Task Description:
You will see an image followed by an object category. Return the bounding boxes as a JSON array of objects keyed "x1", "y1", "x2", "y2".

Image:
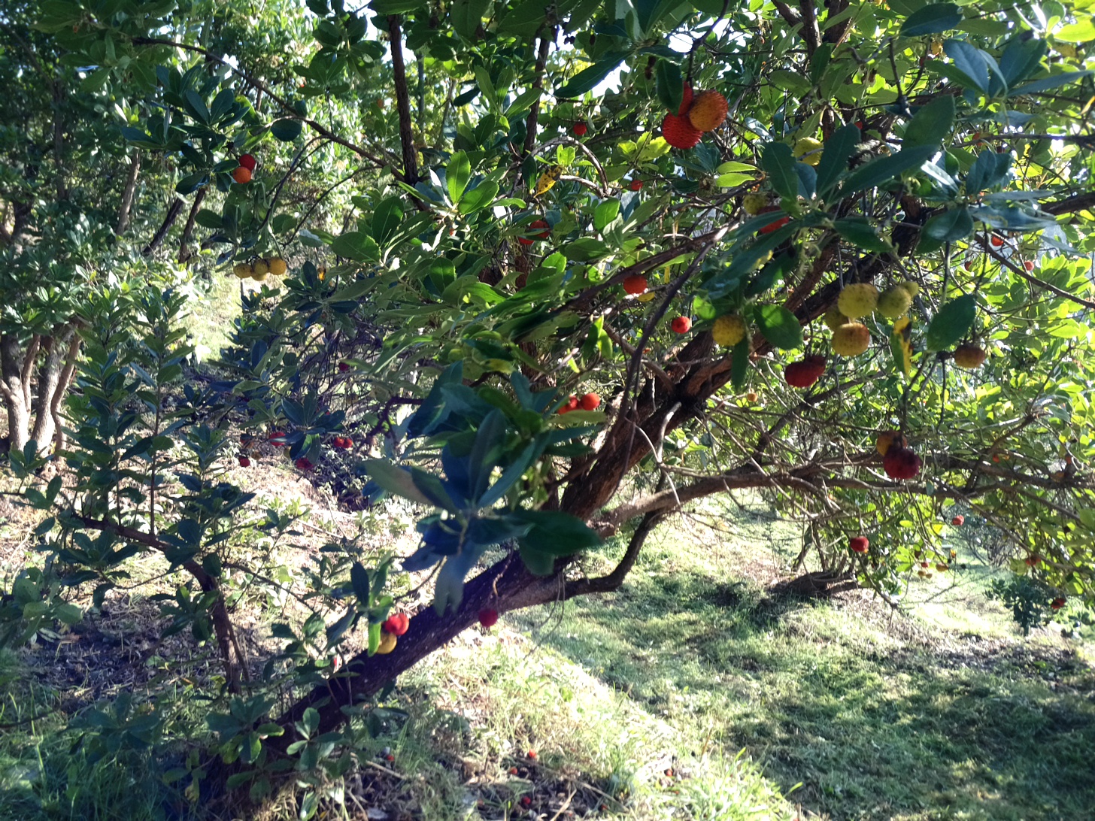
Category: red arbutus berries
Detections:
[
  {"x1": 632, "y1": 180, "x2": 642, "y2": 190},
  {"x1": 335, "y1": 436, "x2": 344, "y2": 447},
  {"x1": 564, "y1": 394, "x2": 579, "y2": 411},
  {"x1": 757, "y1": 202, "x2": 787, "y2": 232},
  {"x1": 479, "y1": 608, "x2": 499, "y2": 628},
  {"x1": 884, "y1": 447, "x2": 918, "y2": 480},
  {"x1": 238, "y1": 153, "x2": 256, "y2": 170},
  {"x1": 239, "y1": 458, "x2": 250, "y2": 467},
  {"x1": 269, "y1": 430, "x2": 285, "y2": 447},
  {"x1": 390, "y1": 612, "x2": 415, "y2": 635},
  {"x1": 1026, "y1": 557, "x2": 1036, "y2": 565},
  {"x1": 342, "y1": 438, "x2": 353, "y2": 448},
  {"x1": 1055, "y1": 598, "x2": 1065, "y2": 607},
  {"x1": 297, "y1": 456, "x2": 312, "y2": 469},
  {"x1": 991, "y1": 233, "x2": 1003, "y2": 246},
  {"x1": 784, "y1": 361, "x2": 816, "y2": 388},
  {"x1": 581, "y1": 393, "x2": 601, "y2": 409},
  {"x1": 573, "y1": 122, "x2": 587, "y2": 134},
  {"x1": 921, "y1": 562, "x2": 929, "y2": 568},
  {"x1": 624, "y1": 275, "x2": 648, "y2": 294},
  {"x1": 804, "y1": 354, "x2": 829, "y2": 376},
  {"x1": 953, "y1": 517, "x2": 963, "y2": 525},
  {"x1": 852, "y1": 536, "x2": 869, "y2": 552},
  {"x1": 387, "y1": 616, "x2": 401, "y2": 632},
  {"x1": 1051, "y1": 600, "x2": 1059, "y2": 608},
  {"x1": 531, "y1": 218, "x2": 549, "y2": 238},
  {"x1": 662, "y1": 112, "x2": 702, "y2": 147},
  {"x1": 671, "y1": 316, "x2": 691, "y2": 334},
  {"x1": 1022, "y1": 261, "x2": 1034, "y2": 270}
]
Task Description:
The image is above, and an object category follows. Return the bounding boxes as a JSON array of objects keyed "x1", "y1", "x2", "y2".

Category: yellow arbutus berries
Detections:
[
  {"x1": 832, "y1": 319, "x2": 870, "y2": 356},
  {"x1": 268, "y1": 256, "x2": 287, "y2": 274},
  {"x1": 875, "y1": 427, "x2": 909, "y2": 454},
  {"x1": 687, "y1": 91, "x2": 727, "y2": 129},
  {"x1": 955, "y1": 345, "x2": 984, "y2": 369},
  {"x1": 748, "y1": 393, "x2": 757, "y2": 402},
  {"x1": 919, "y1": 569, "x2": 926, "y2": 576},
  {"x1": 710, "y1": 309, "x2": 745, "y2": 347},
  {"x1": 234, "y1": 166, "x2": 250, "y2": 183},
  {"x1": 379, "y1": 630, "x2": 397, "y2": 654},
  {"x1": 839, "y1": 280, "x2": 878, "y2": 317},
  {"x1": 936, "y1": 562, "x2": 945, "y2": 571}
]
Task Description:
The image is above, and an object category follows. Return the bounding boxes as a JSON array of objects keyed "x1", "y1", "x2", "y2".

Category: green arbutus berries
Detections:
[
  {"x1": 792, "y1": 135, "x2": 821, "y2": 163},
  {"x1": 234, "y1": 262, "x2": 252, "y2": 280},
  {"x1": 252, "y1": 258, "x2": 267, "y2": 274},
  {"x1": 252, "y1": 274, "x2": 267, "y2": 281},
  {"x1": 879, "y1": 284, "x2": 914, "y2": 323}
]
